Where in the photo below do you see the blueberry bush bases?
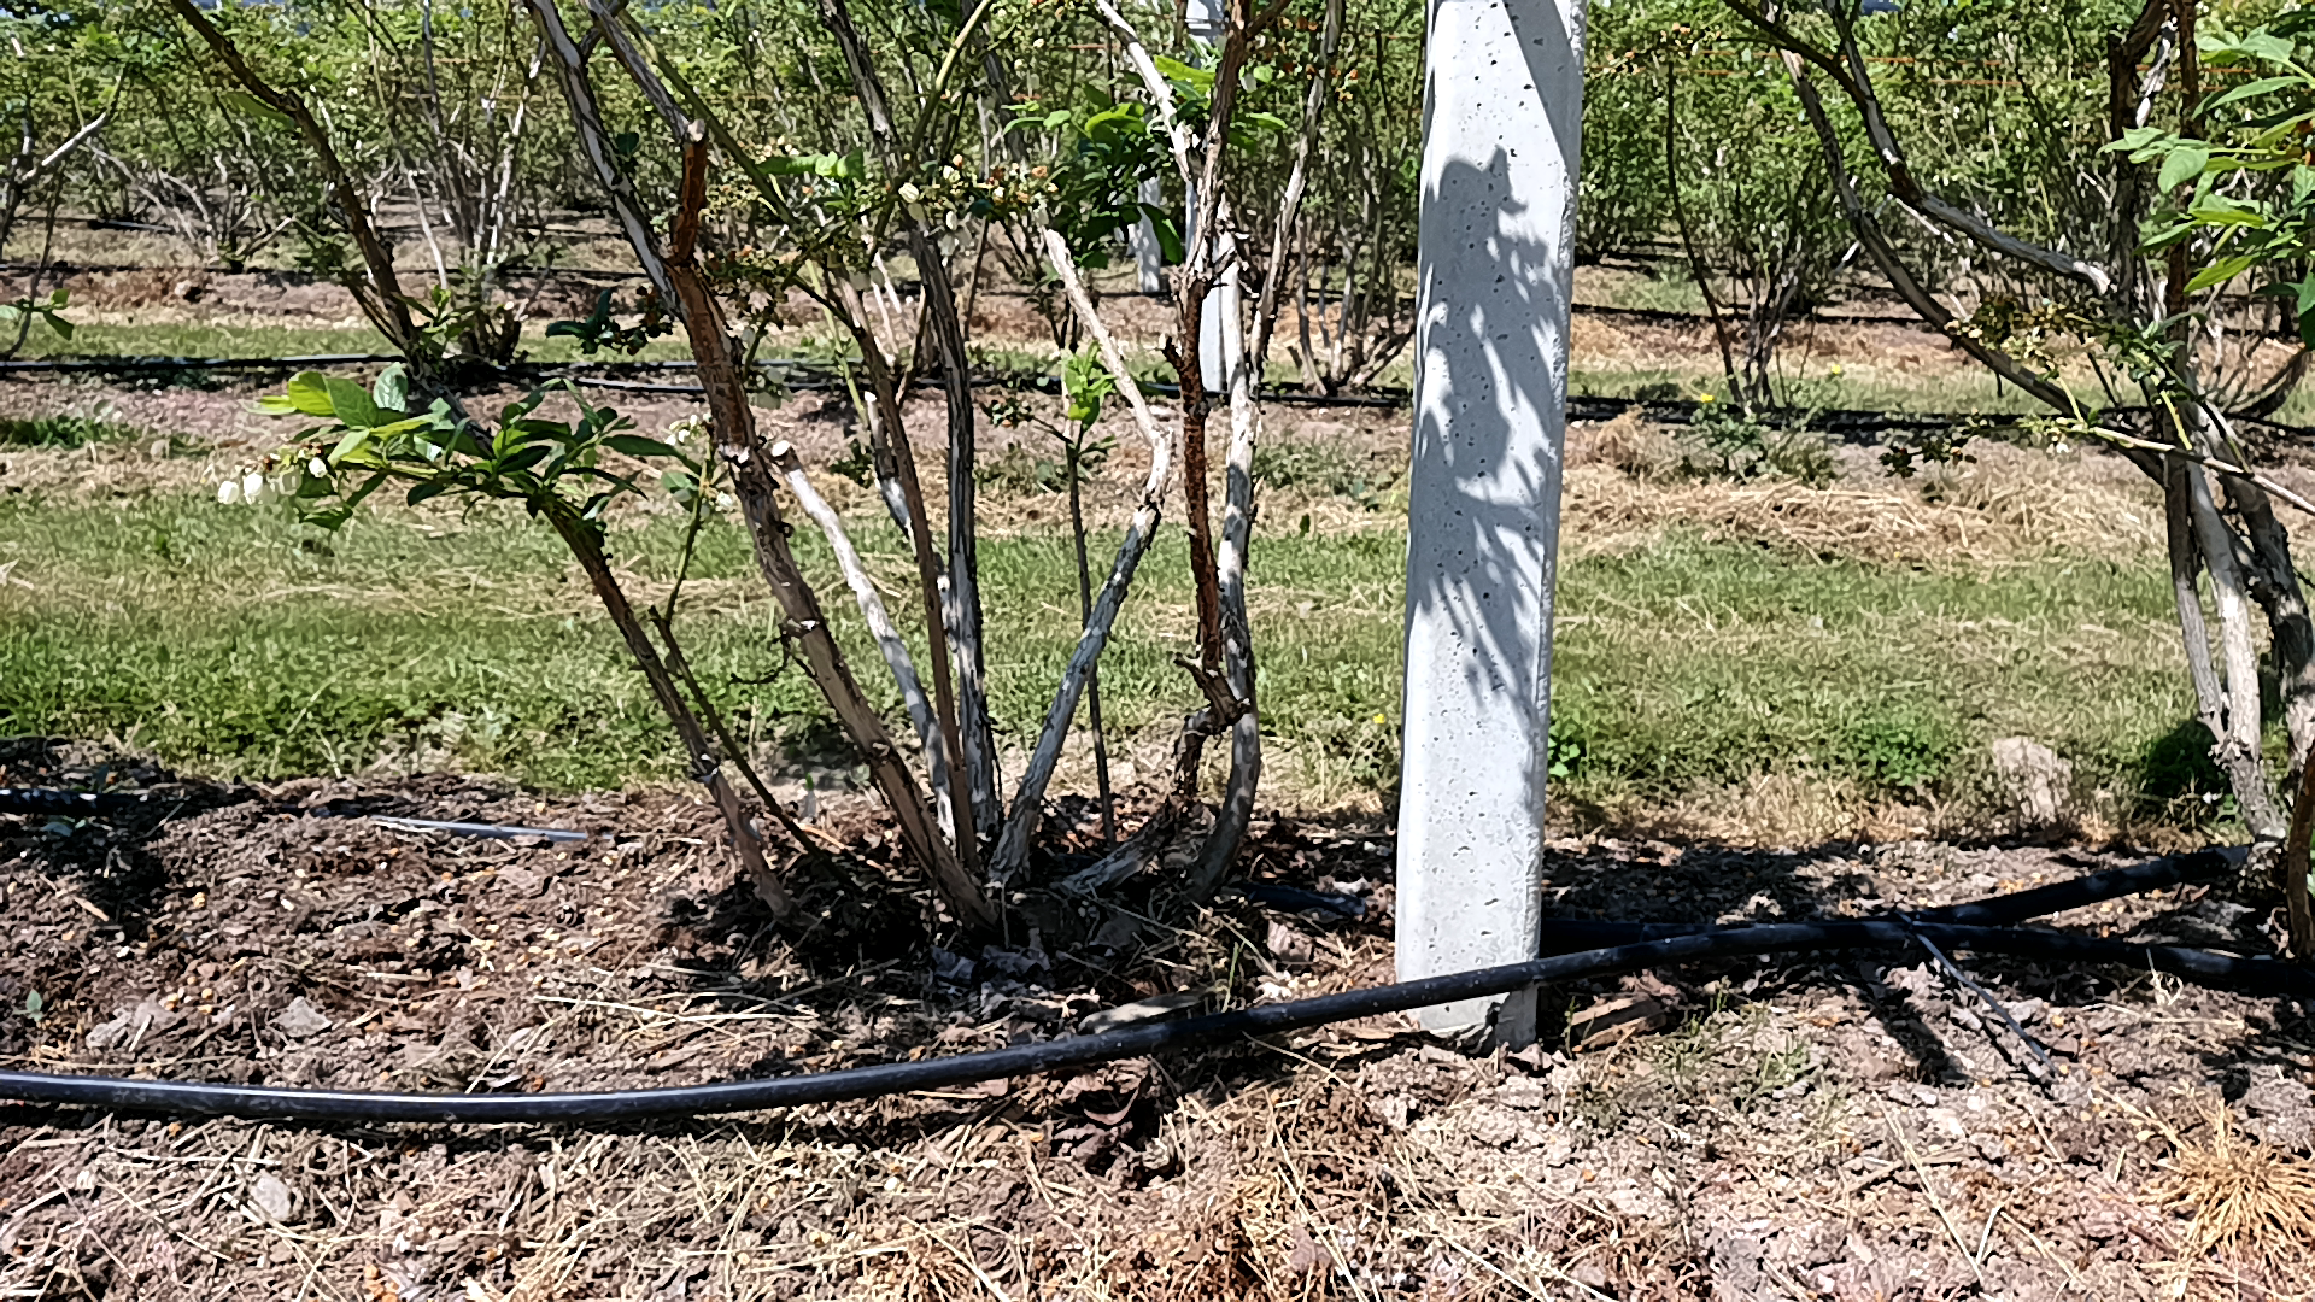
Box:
[1289,327,1402,420]
[1733,251,1859,333]
[1683,331,1823,452]
[189,224,271,281]
[2144,579,2315,1011]
[1577,194,1647,270]
[604,556,1288,1033]
[375,259,552,406]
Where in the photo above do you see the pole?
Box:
[1359,13,1627,1015]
